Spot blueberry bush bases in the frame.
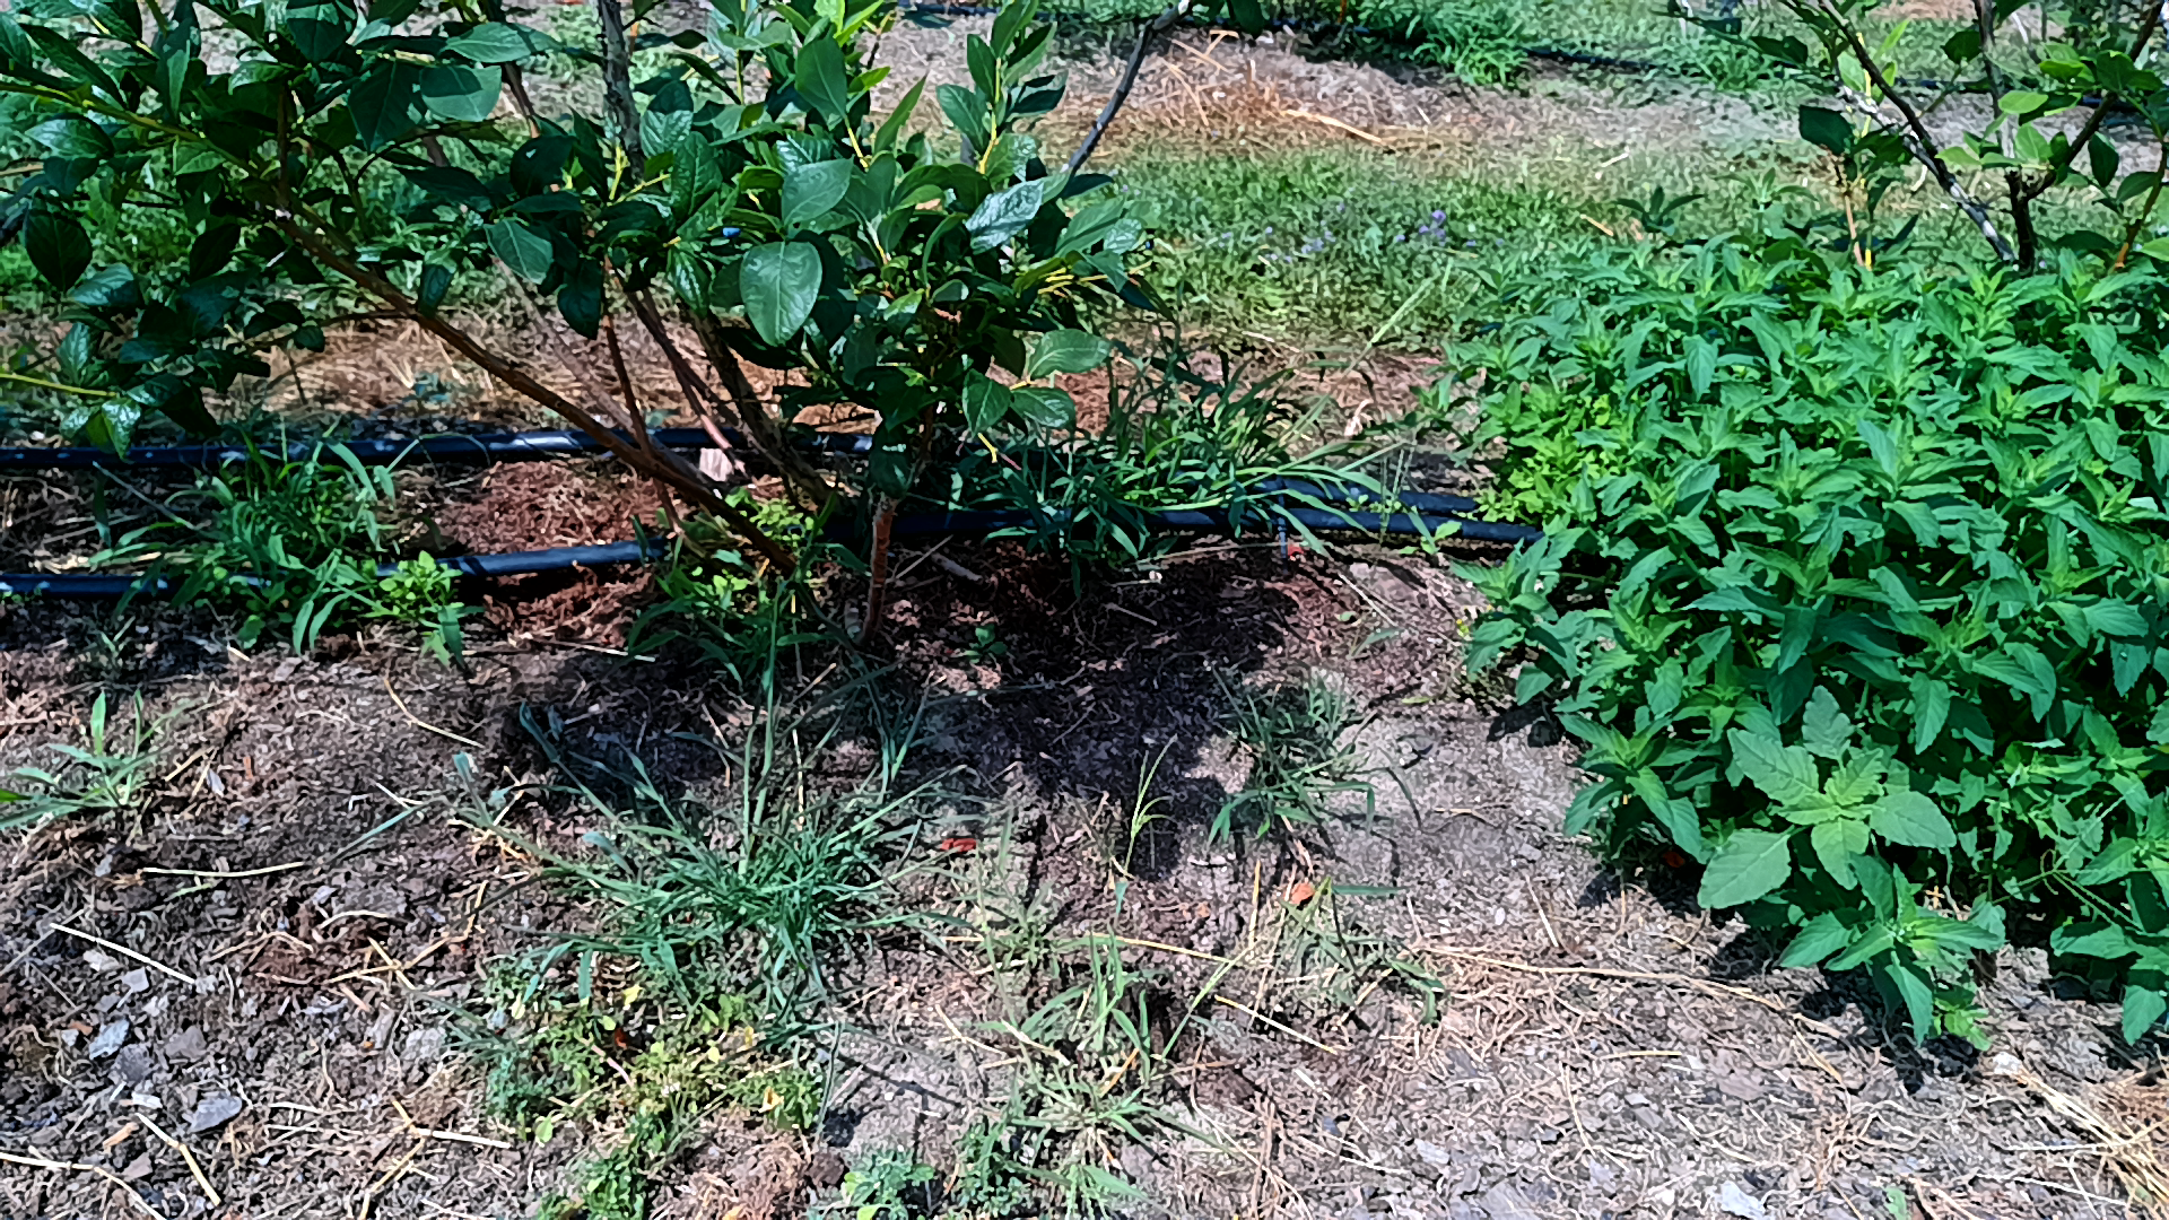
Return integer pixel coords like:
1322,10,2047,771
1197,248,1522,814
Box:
471,173,1069,748
1864,80,2169,453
